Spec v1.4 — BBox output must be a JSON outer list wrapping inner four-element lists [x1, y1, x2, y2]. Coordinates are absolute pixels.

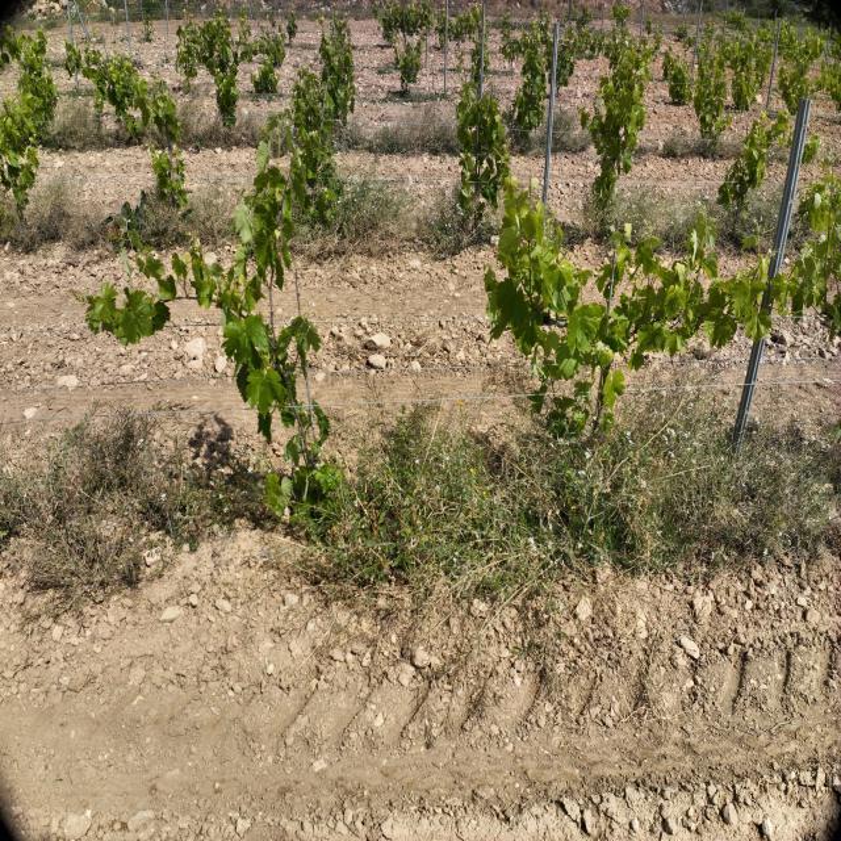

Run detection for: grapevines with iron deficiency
[[473, 156, 841, 448], [81, 120, 360, 531]]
